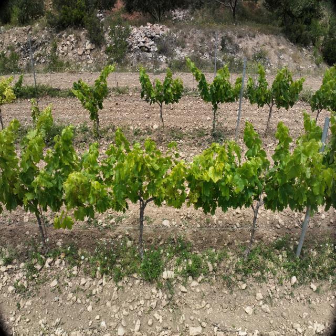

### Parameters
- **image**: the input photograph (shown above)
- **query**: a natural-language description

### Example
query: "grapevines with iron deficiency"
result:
[65,129,234,260]
[0,120,86,256]
[220,114,336,250]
